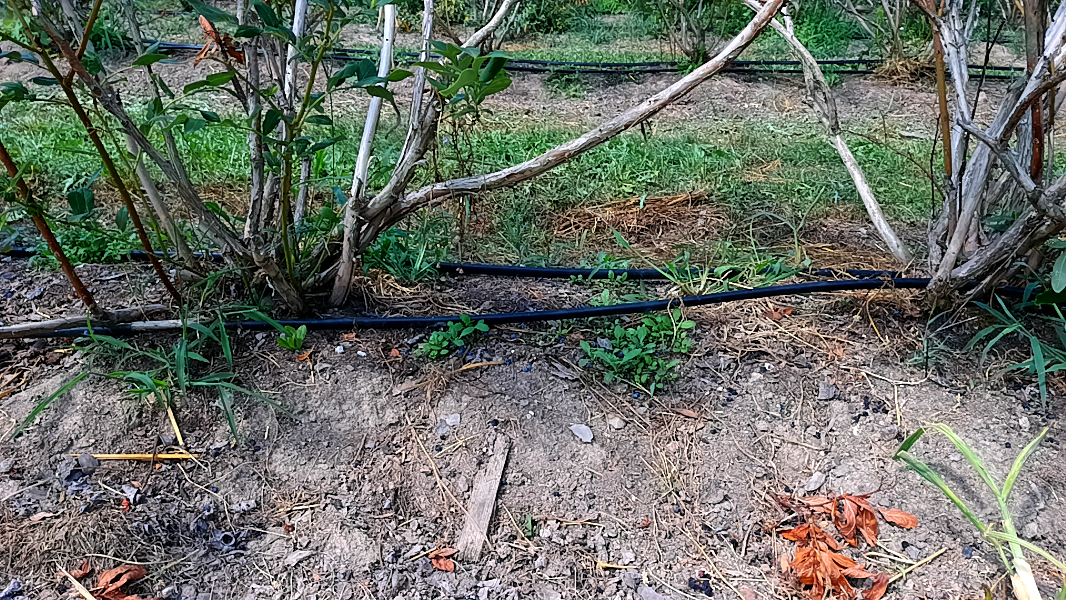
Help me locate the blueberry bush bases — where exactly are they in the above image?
[823,110,1066,348]
[657,22,740,78]
[51,137,456,389]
